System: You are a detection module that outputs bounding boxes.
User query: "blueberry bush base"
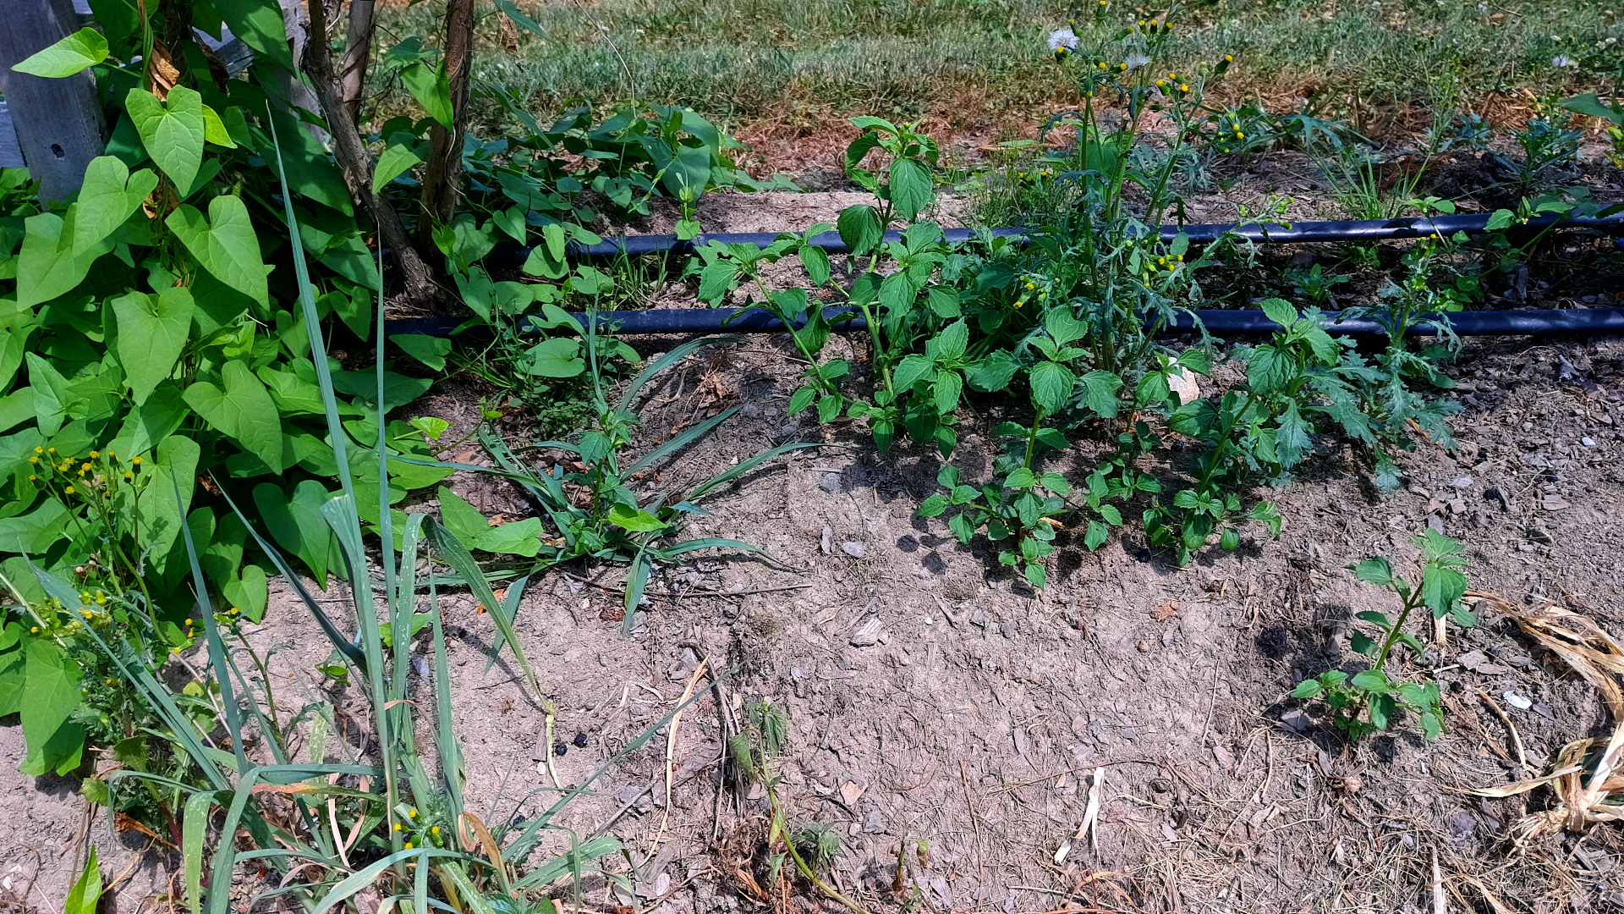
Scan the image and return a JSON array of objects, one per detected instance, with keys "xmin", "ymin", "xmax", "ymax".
[{"xmin": 184, "ymin": 81, "xmax": 560, "ymax": 407}]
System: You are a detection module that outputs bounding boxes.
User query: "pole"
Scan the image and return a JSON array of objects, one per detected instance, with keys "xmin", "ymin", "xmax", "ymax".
[{"xmin": 0, "ymin": 7, "xmax": 129, "ymax": 274}]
